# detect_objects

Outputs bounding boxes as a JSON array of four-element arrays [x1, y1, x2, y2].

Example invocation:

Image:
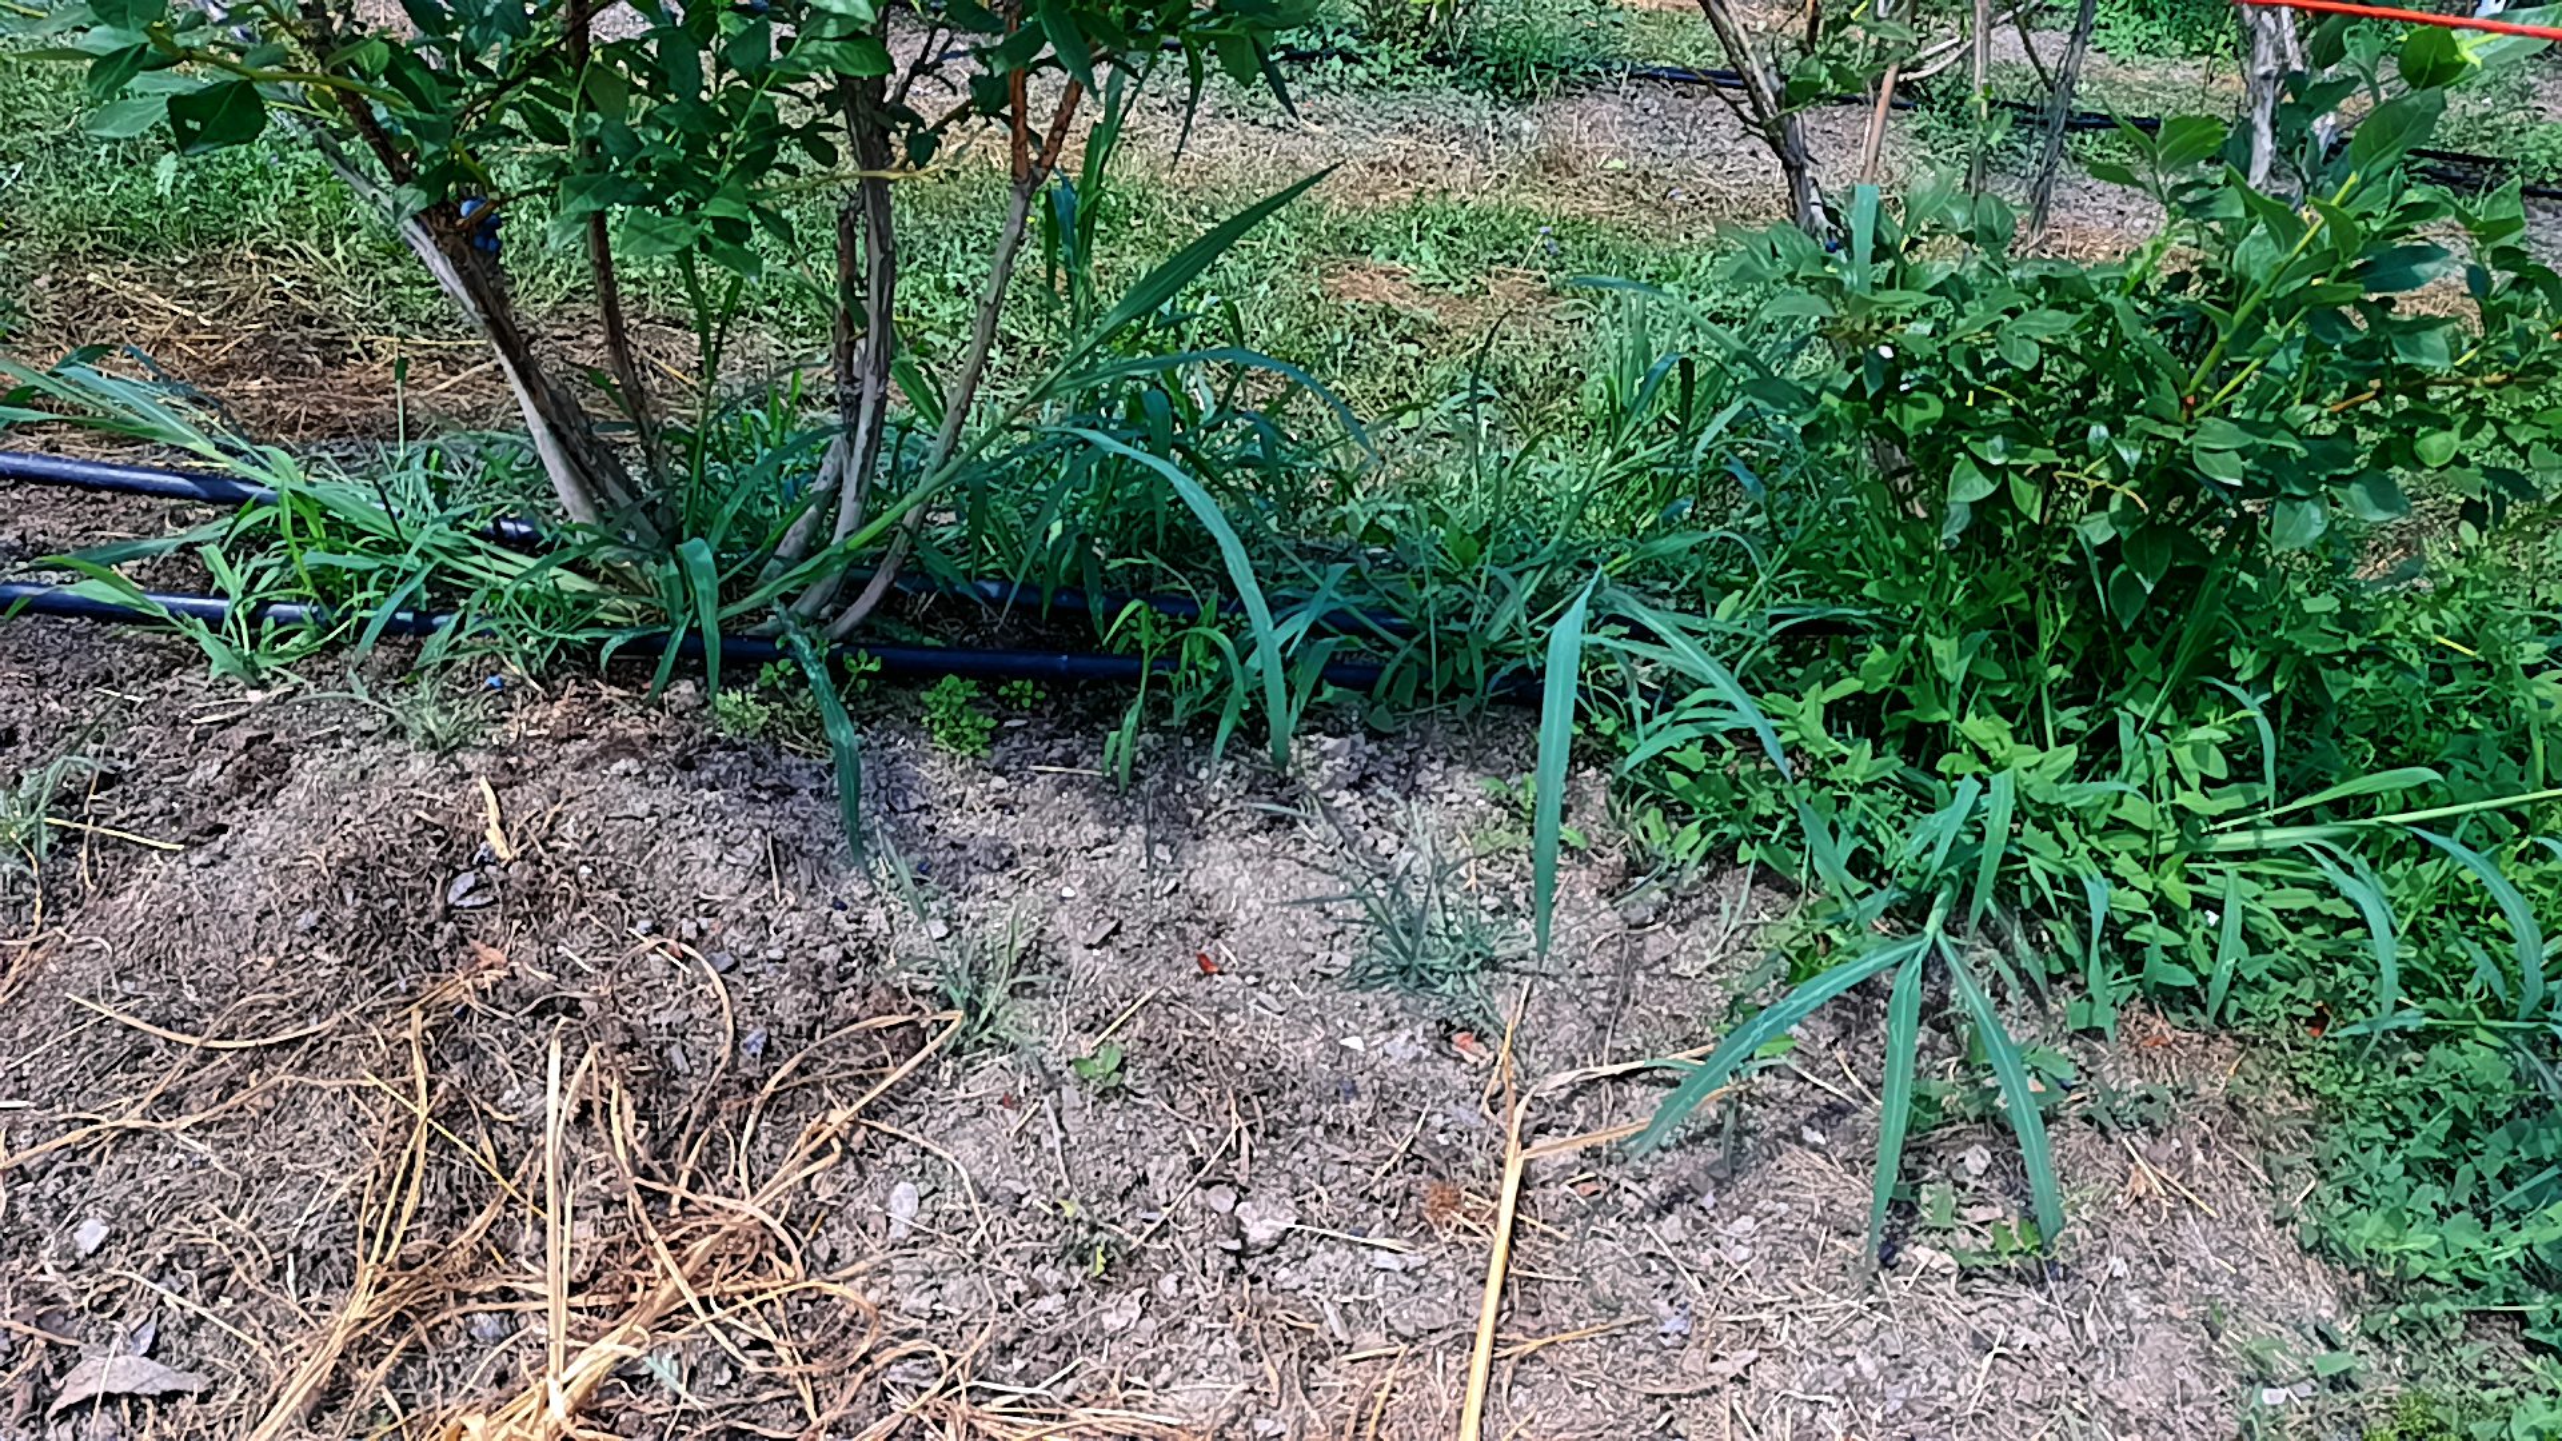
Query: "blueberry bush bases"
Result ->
[[452, 311, 1093, 751], [1678, 71, 2381, 1000]]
